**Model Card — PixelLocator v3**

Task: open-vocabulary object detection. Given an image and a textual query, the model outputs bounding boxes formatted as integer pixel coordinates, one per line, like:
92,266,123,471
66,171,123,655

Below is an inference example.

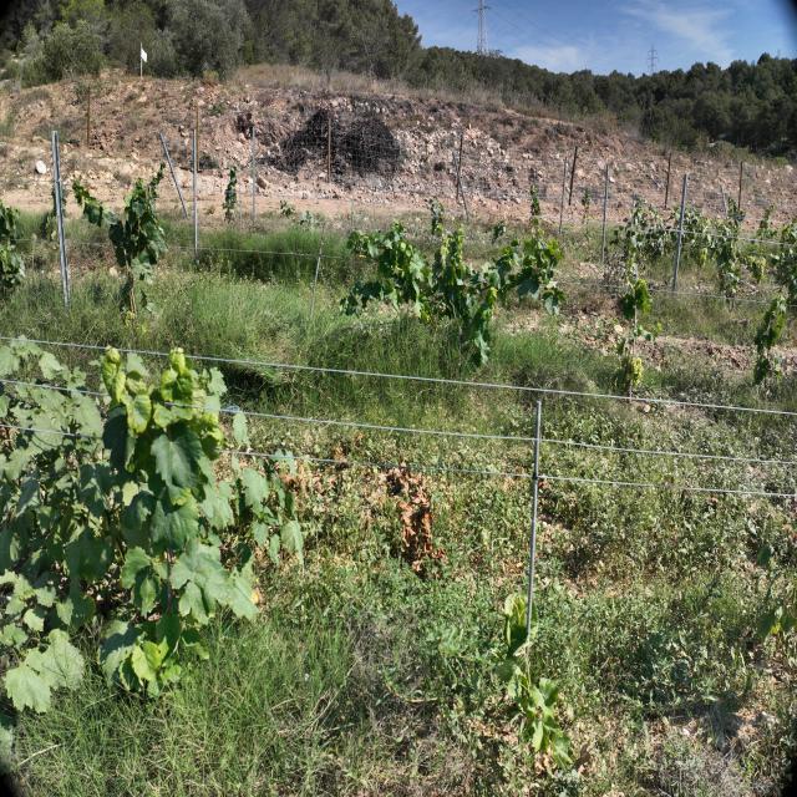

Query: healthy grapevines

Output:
0,330,301,737
467,578,589,791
